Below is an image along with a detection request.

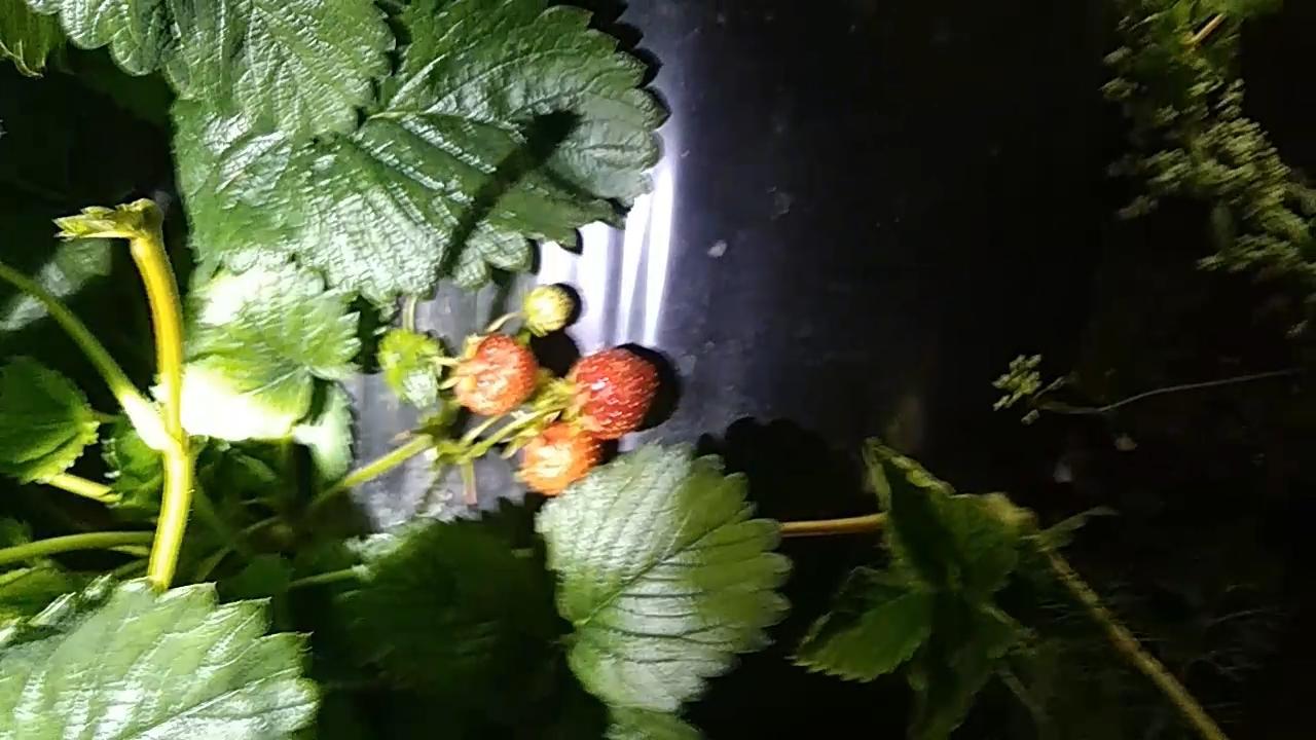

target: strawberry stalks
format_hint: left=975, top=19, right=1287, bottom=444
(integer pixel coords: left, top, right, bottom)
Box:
left=365, top=330, right=467, bottom=376
left=476, top=304, right=525, bottom=333
left=472, top=372, right=600, bottom=450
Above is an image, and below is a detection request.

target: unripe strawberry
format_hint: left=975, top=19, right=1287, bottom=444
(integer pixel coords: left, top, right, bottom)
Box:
left=517, top=283, right=584, bottom=329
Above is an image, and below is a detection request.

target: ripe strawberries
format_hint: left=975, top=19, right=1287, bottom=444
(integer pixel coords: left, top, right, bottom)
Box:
left=462, top=326, right=542, bottom=411
left=513, top=425, right=601, bottom=488
left=558, top=343, right=670, bottom=440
